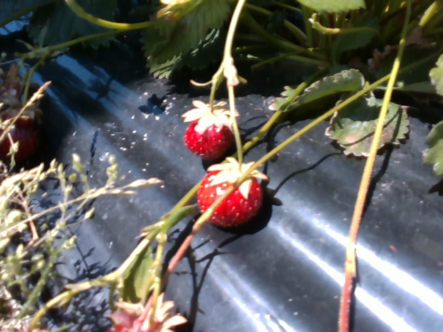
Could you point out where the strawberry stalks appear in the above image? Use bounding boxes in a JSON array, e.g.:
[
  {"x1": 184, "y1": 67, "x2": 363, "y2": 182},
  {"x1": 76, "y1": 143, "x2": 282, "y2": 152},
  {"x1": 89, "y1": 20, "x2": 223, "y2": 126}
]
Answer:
[
  {"x1": 232, "y1": 115, "x2": 254, "y2": 182},
  {"x1": 205, "y1": 66, "x2": 223, "y2": 130}
]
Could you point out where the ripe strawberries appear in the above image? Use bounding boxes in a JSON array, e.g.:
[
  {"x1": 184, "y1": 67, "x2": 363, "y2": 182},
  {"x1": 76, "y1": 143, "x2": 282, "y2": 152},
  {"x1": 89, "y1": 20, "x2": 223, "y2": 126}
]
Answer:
[
  {"x1": 182, "y1": 113, "x2": 234, "y2": 157},
  {"x1": 195, "y1": 163, "x2": 266, "y2": 227}
]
